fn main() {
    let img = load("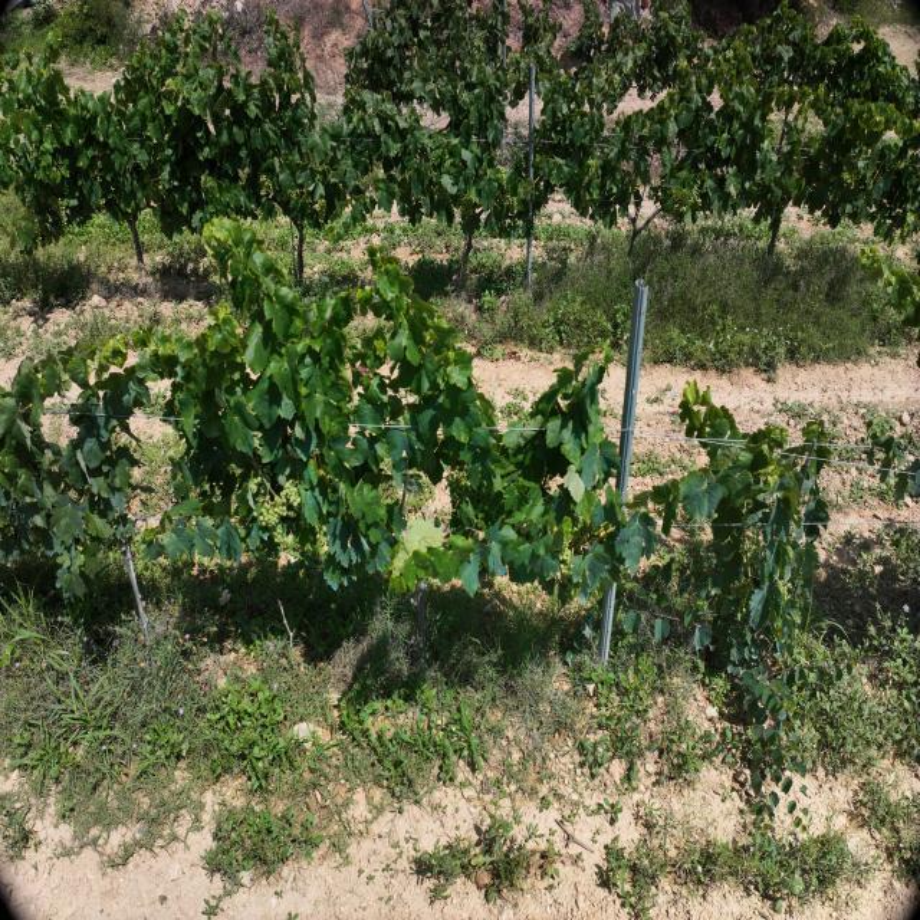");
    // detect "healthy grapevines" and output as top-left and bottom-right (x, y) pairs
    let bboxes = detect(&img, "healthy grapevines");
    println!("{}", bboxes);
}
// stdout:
(646, 377), (837, 713)
(0, 314), (149, 663)
(154, 253), (611, 687)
